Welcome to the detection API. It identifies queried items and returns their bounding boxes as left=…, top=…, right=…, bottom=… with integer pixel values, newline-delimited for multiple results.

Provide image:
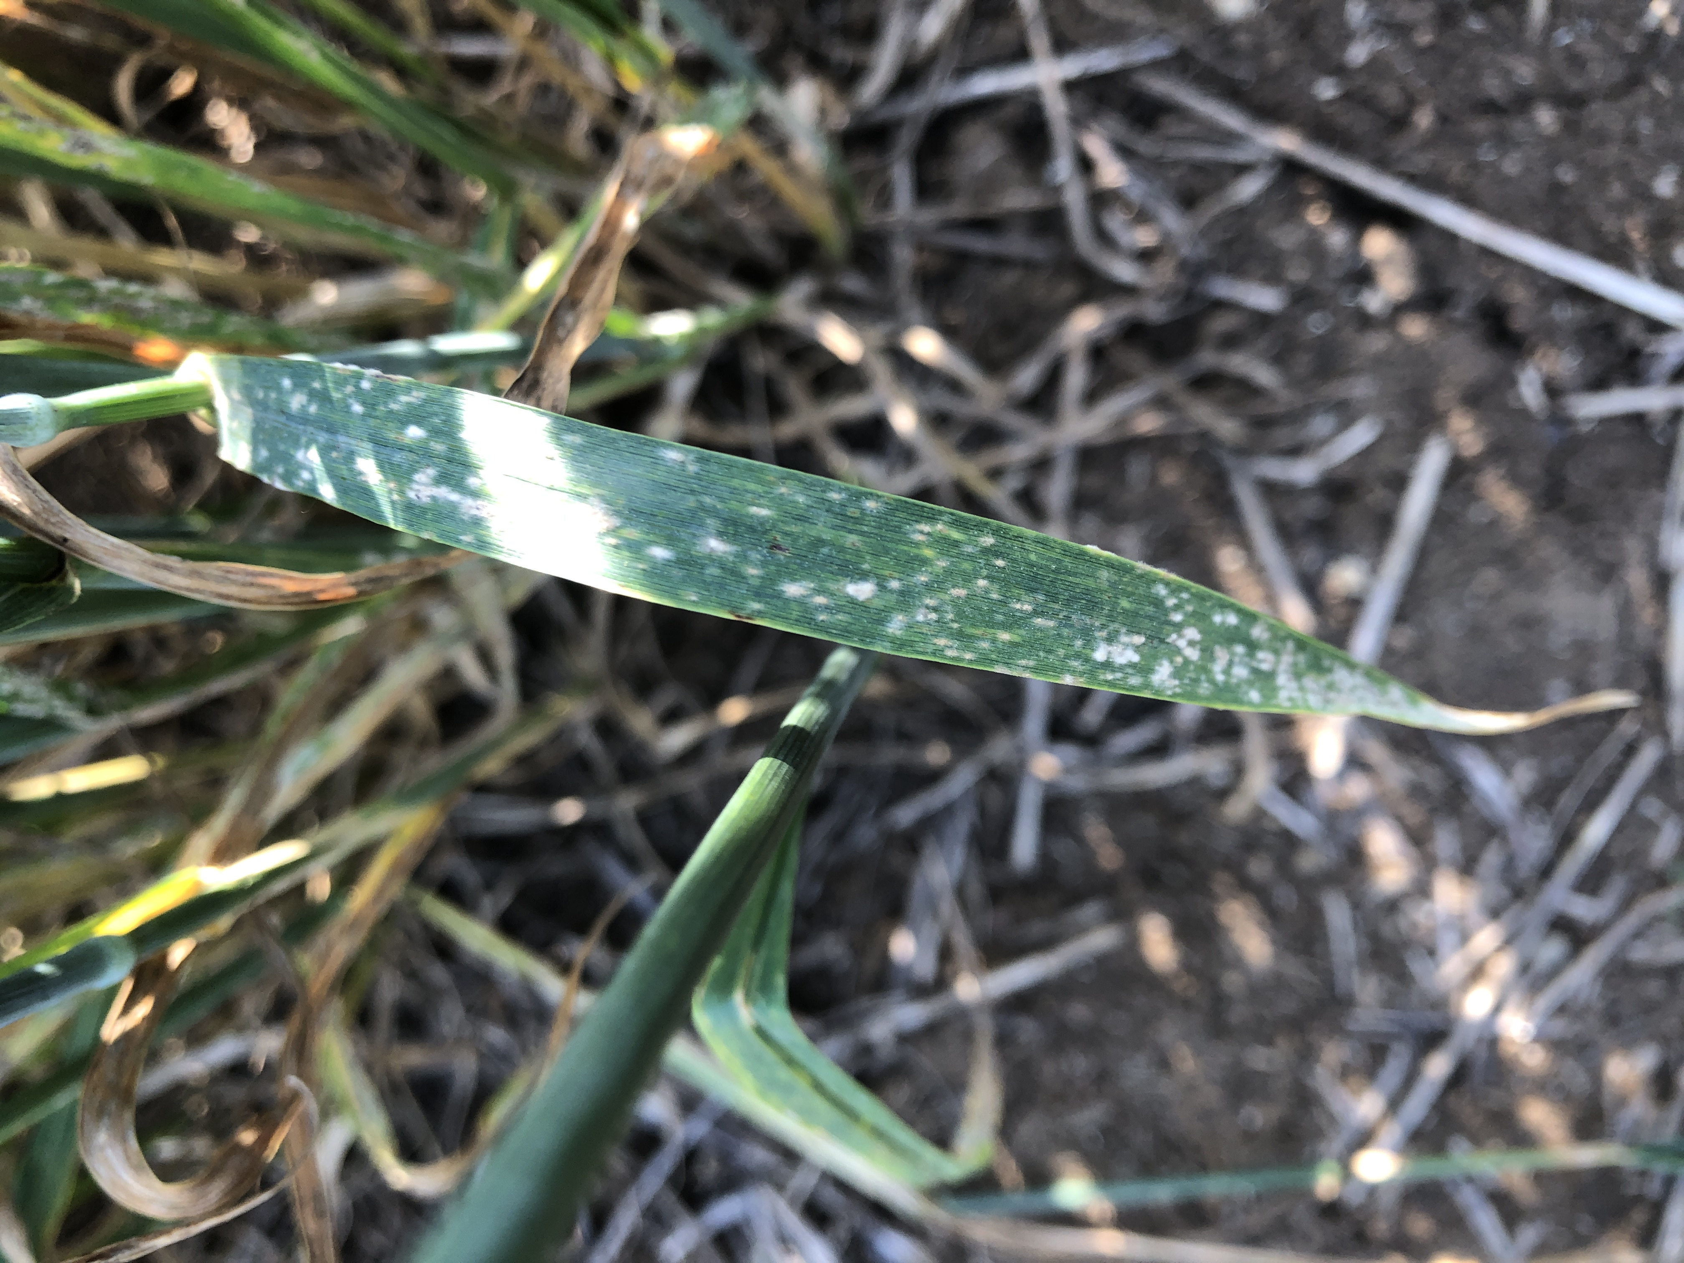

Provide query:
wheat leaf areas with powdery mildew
left=12, top=302, right=240, bottom=349
left=187, top=309, right=1435, bottom=720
